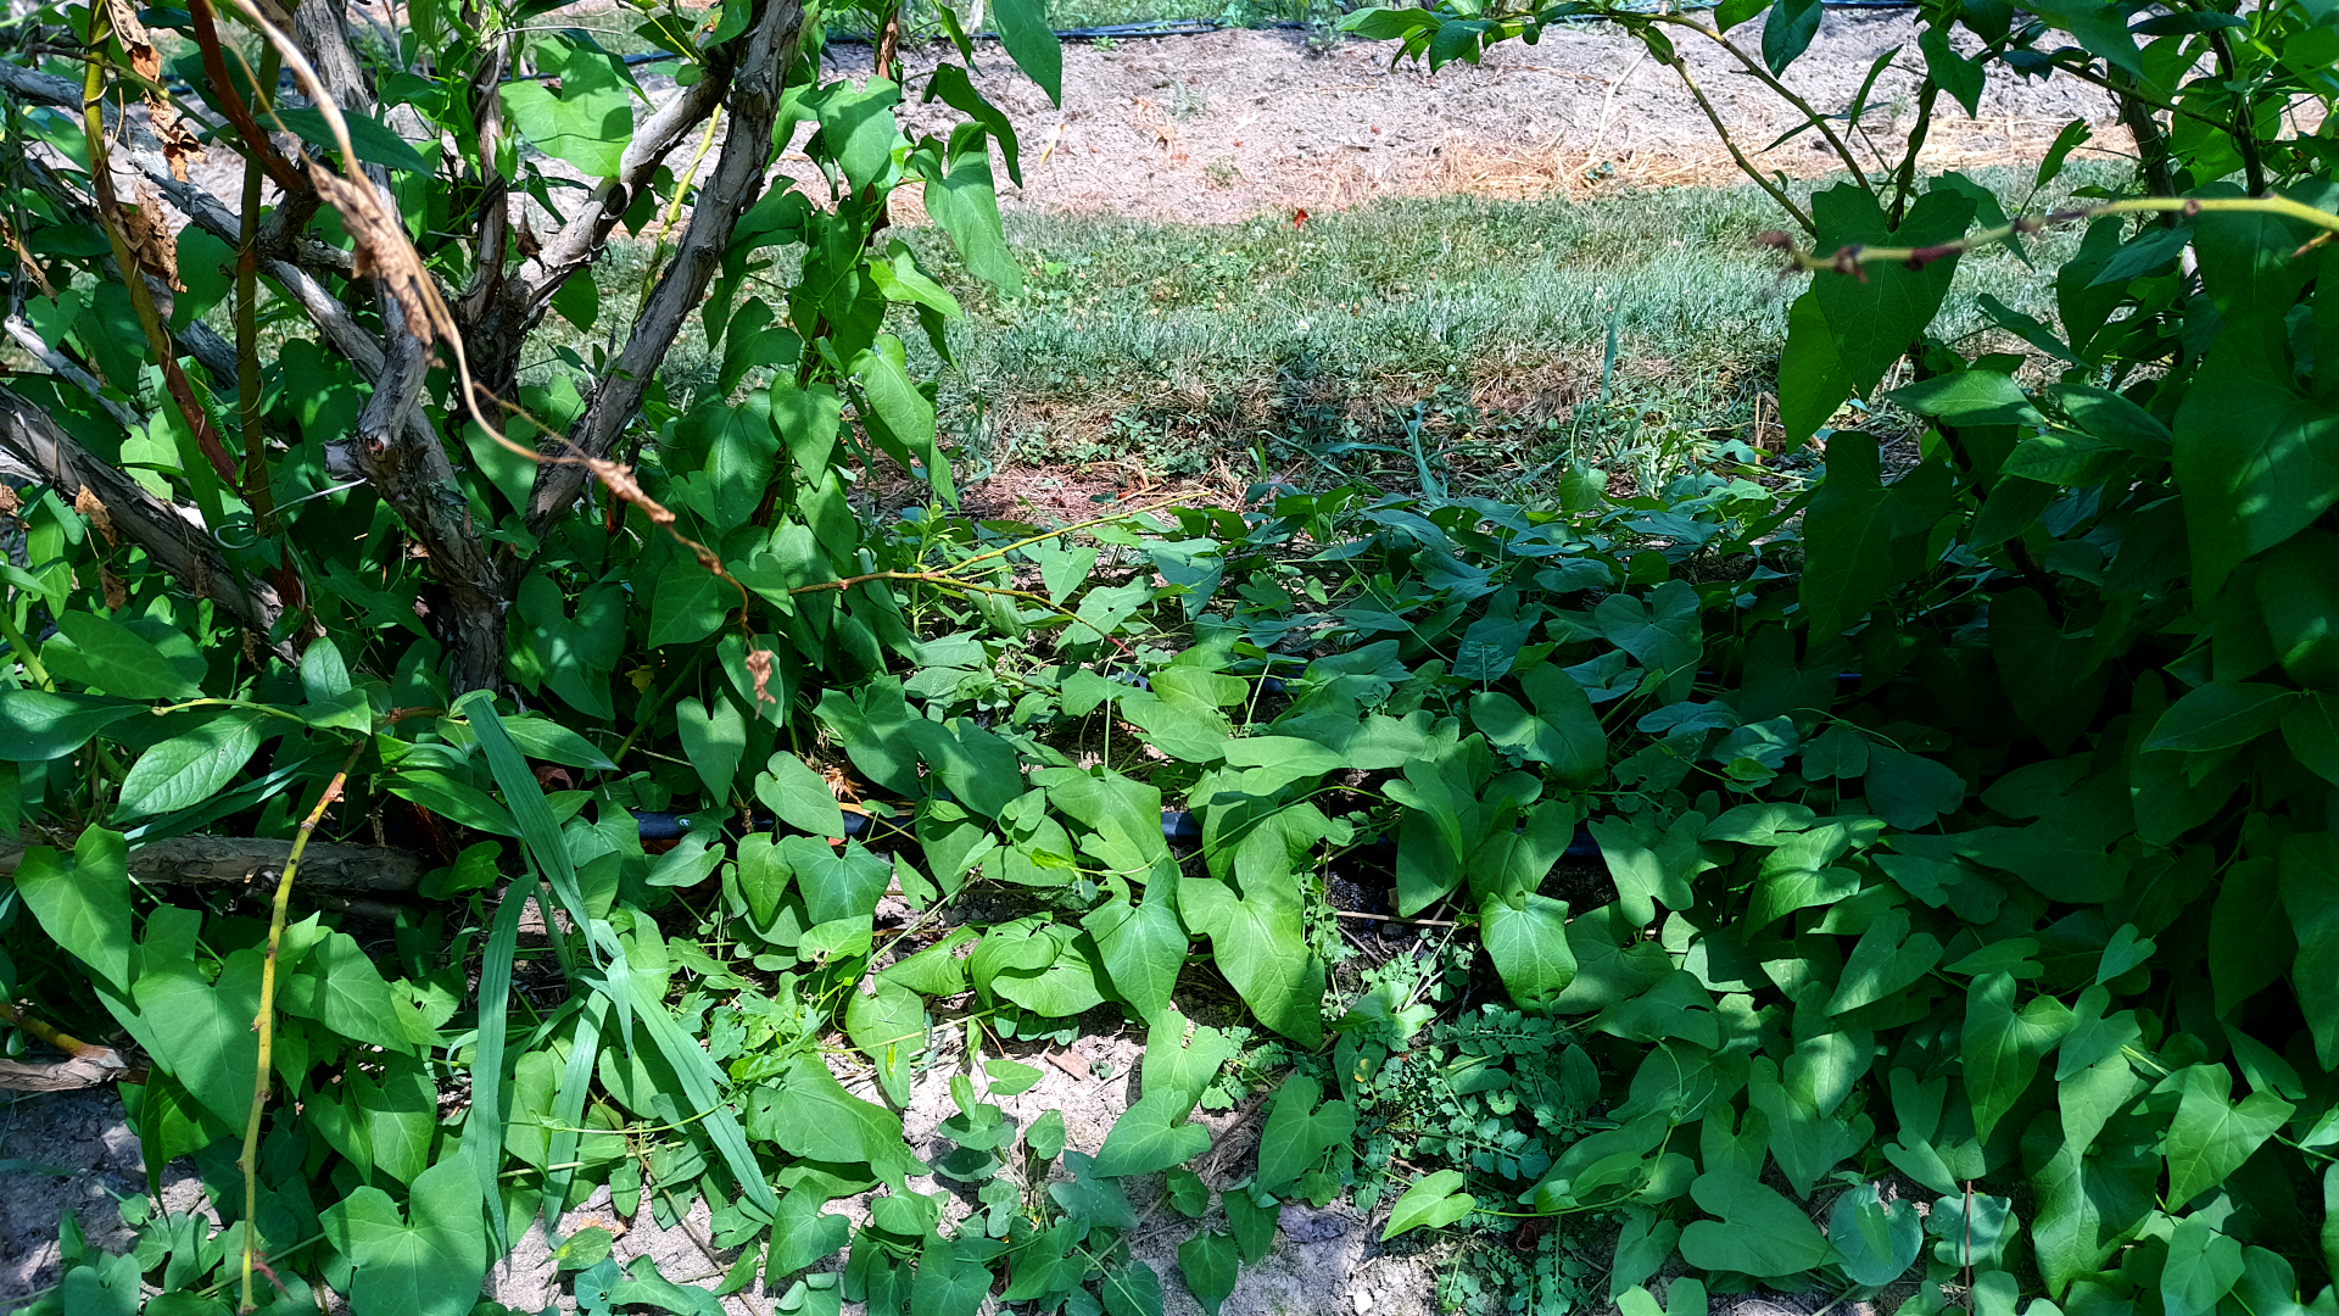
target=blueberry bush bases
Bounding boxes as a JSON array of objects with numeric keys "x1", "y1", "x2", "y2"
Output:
[
  {"x1": 1904, "y1": 253, "x2": 2312, "y2": 856},
  {"x1": 0, "y1": 216, "x2": 859, "y2": 974}
]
